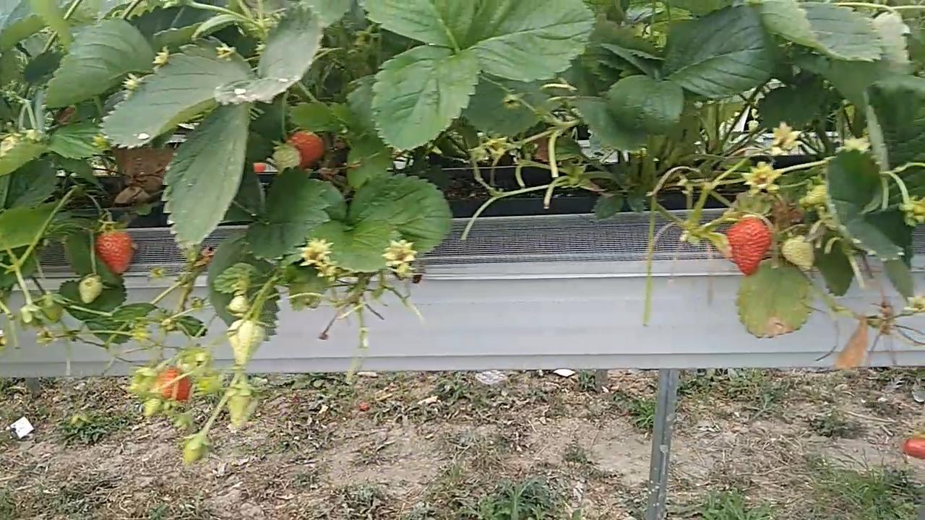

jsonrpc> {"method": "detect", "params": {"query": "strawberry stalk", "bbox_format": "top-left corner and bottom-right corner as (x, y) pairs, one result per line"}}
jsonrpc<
(97, 210), (122, 241)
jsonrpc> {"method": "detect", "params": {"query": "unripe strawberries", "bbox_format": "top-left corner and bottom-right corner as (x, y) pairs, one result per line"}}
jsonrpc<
(779, 238), (817, 273)
(225, 321), (264, 363)
(272, 145), (300, 175)
(227, 298), (253, 313)
(174, 432), (212, 466)
(224, 389), (261, 431)
(141, 400), (165, 419)
(77, 276), (103, 307)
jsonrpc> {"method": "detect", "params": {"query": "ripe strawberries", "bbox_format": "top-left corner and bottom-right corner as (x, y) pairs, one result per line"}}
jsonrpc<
(898, 425), (924, 463)
(729, 218), (774, 274)
(95, 232), (136, 276)
(150, 364), (190, 396)
(292, 132), (331, 166)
